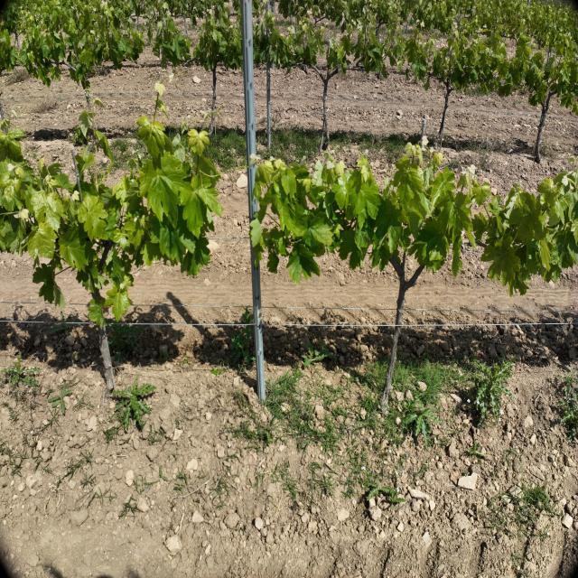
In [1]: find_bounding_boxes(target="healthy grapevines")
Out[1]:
[246,135,558,420]
[0,91,231,402]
